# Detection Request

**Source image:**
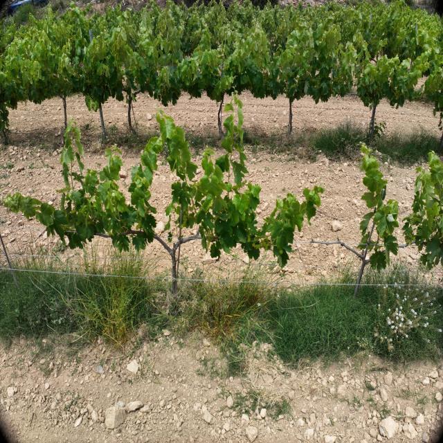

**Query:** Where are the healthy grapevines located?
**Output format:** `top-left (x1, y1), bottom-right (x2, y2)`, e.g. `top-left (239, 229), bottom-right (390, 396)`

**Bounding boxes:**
top-left (0, 109), bottom-right (329, 316)
top-left (338, 139), bottom-right (443, 306)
